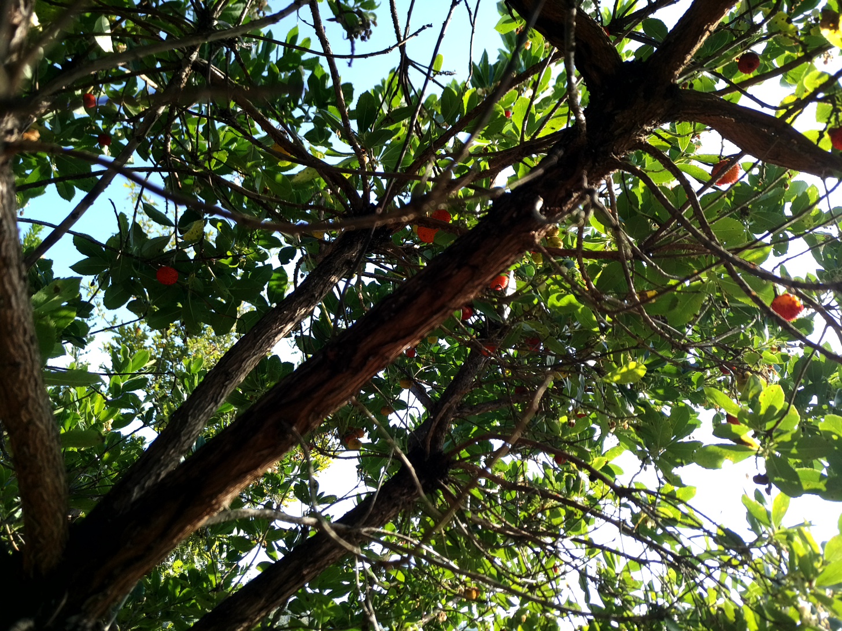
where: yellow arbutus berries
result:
[311,228,326,239]
[272,139,293,159]
[400,377,412,388]
[347,438,362,451]
[353,427,365,438]
[380,406,390,416]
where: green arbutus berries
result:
[546,225,560,238]
[531,252,544,263]
[547,236,563,249]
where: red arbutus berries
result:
[430,208,451,222]
[417,224,441,243]
[738,52,761,74]
[555,453,567,465]
[711,158,740,186]
[157,266,178,285]
[770,292,804,321]
[482,343,497,356]
[98,133,112,146]
[405,348,416,357]
[504,109,511,117]
[460,306,473,320]
[489,274,508,291]
[83,92,96,108]
[830,126,842,154]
